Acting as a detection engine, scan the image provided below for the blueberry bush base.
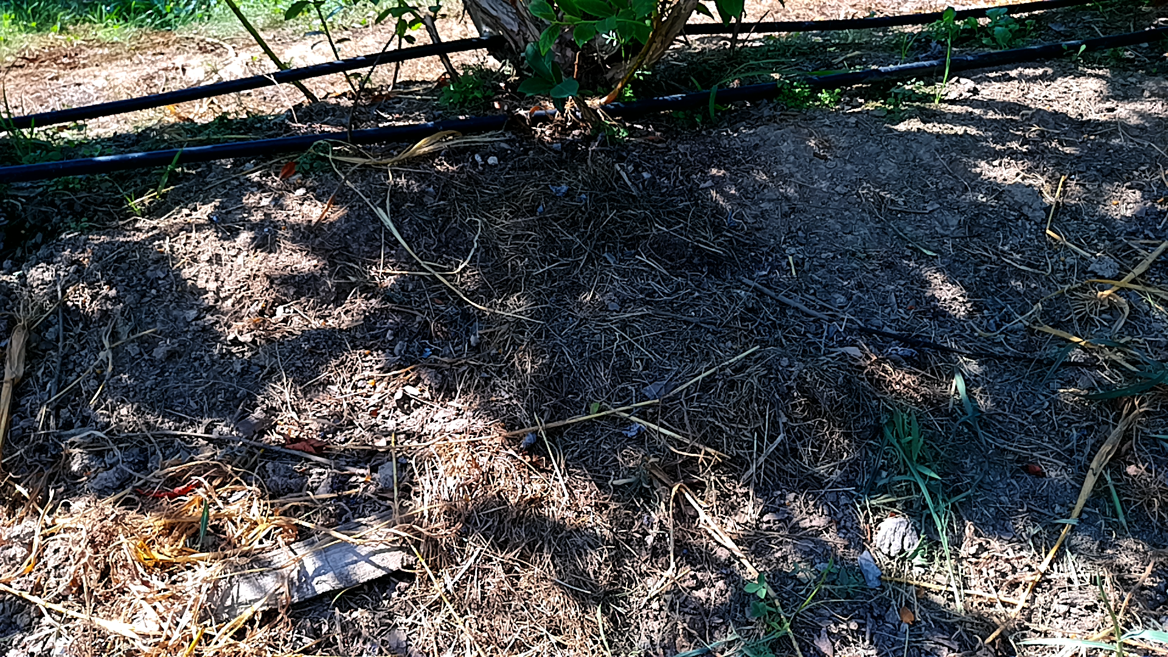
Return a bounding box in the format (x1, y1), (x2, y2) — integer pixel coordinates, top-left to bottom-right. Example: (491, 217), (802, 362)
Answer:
(466, 12), (714, 136)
